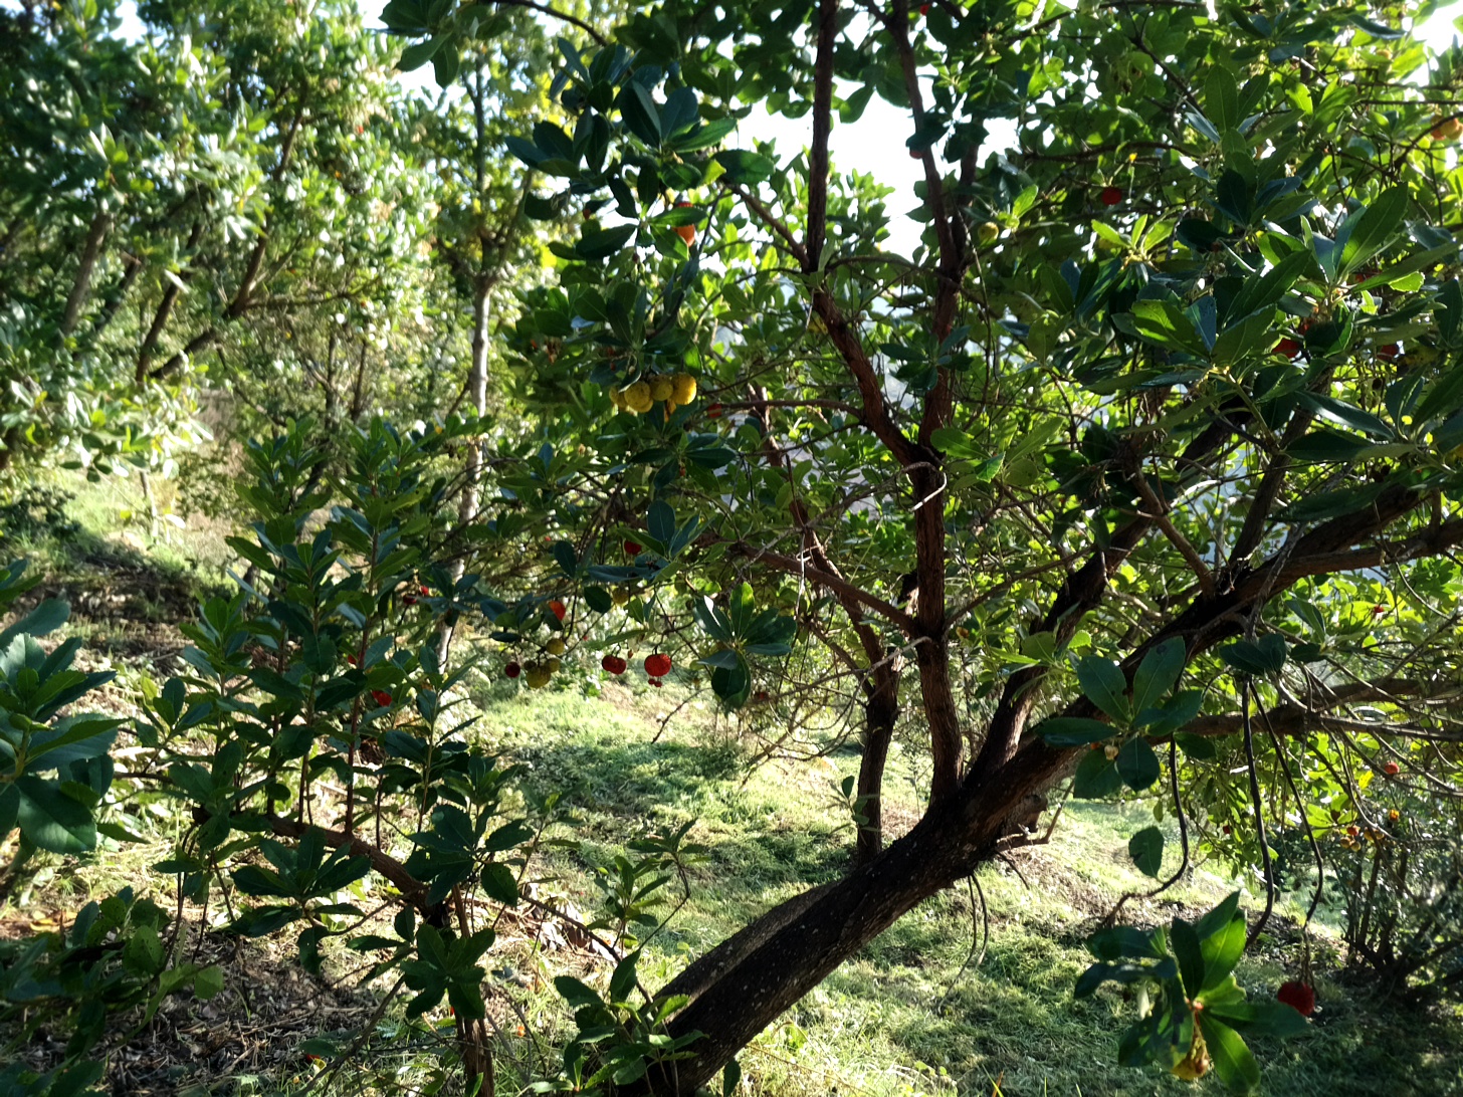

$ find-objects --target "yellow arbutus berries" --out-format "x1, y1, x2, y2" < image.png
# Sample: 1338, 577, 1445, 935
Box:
675, 223, 696, 247
672, 372, 697, 404
624, 382, 650, 406
1340, 837, 1351, 848
1430, 128, 1445, 140
1364, 829, 1374, 841
1389, 809, 1400, 821
648, 373, 673, 401
1350, 840, 1361, 851
608, 385, 626, 409
1373, 830, 1385, 839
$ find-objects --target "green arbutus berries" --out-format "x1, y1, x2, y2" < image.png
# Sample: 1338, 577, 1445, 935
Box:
613, 587, 628, 602
547, 636, 565, 654
526, 665, 553, 688
544, 658, 561, 672
1442, 117, 1459, 137
976, 221, 1000, 242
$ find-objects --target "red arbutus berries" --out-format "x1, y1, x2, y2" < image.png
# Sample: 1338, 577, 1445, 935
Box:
1222, 825, 1233, 834
402, 593, 416, 605
1377, 343, 1400, 361
1101, 187, 1122, 204
379, 693, 392, 707
624, 539, 641, 554
655, 681, 662, 687
1275, 980, 1315, 1017
601, 655, 618, 670
348, 654, 357, 664
1271, 335, 1300, 358
612, 657, 627, 674
1347, 825, 1359, 835
1383, 760, 1400, 775
506, 662, 520, 677
548, 600, 566, 620
648, 679, 655, 685
920, 4, 931, 15
707, 403, 722, 419
418, 585, 429, 596
645, 652, 671, 677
